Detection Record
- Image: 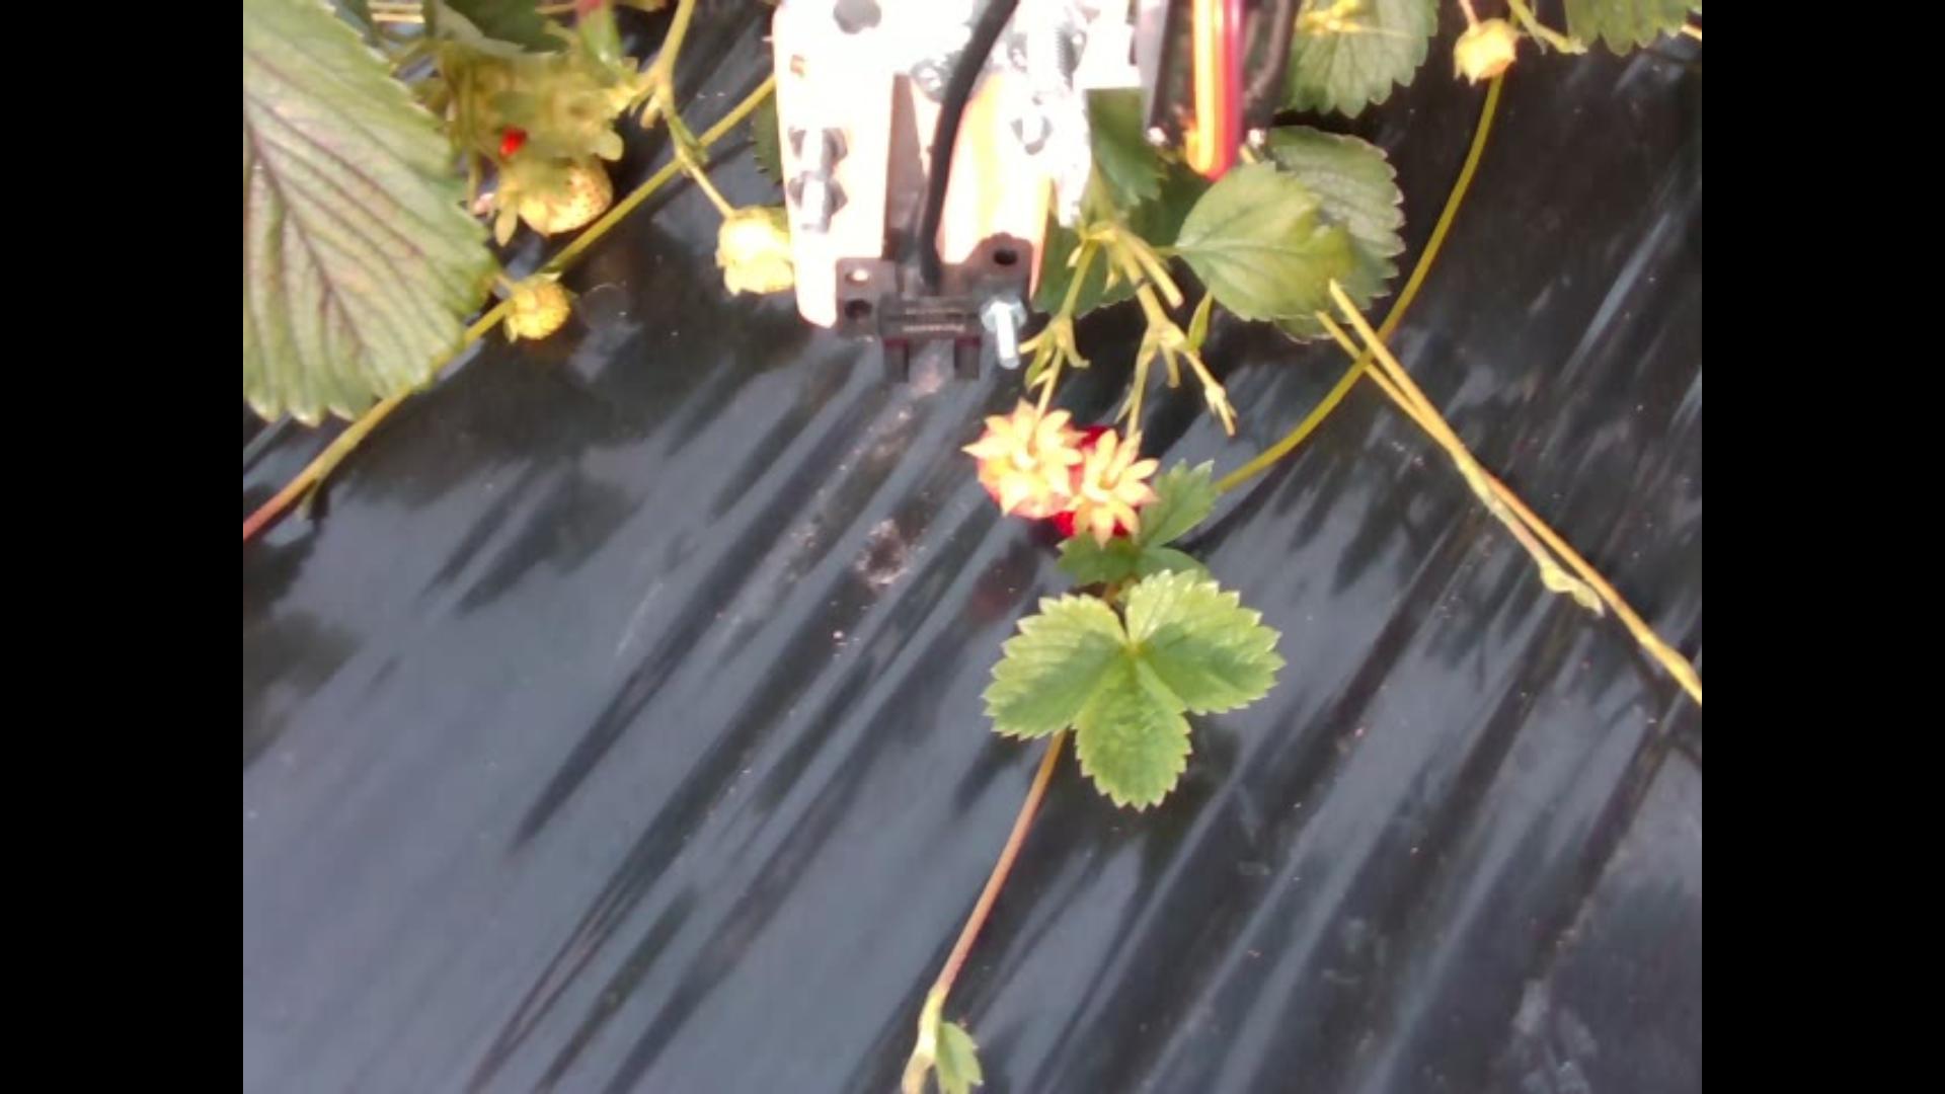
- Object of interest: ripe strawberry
[1044,417,1156,558]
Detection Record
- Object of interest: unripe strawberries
[492,272,579,344]
[690,191,808,296]
[970,403,1092,525]
[489,149,630,238]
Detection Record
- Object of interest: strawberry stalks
[674,162,751,231]
[1084,371,1162,474]
[1000,324,1070,464]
